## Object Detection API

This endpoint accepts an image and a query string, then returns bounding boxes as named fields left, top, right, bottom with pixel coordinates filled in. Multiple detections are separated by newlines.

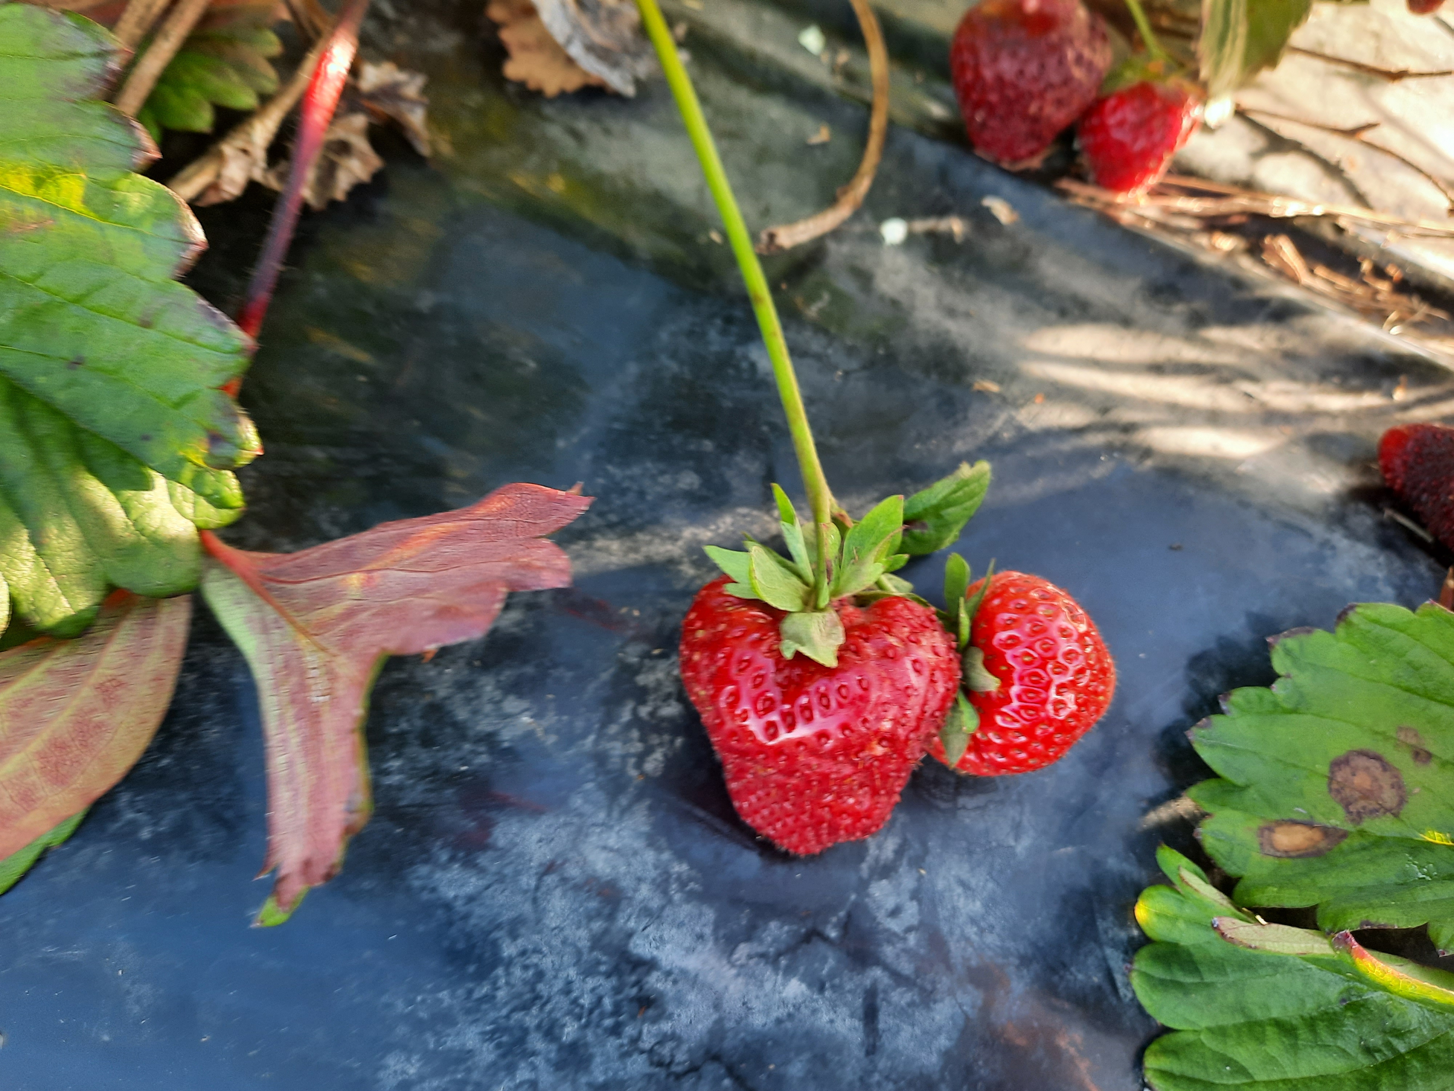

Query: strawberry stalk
left=722, top=228, right=846, bottom=642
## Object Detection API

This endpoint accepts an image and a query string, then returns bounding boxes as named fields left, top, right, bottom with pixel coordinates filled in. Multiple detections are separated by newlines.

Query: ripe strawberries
left=1089, top=76, right=1196, bottom=190
left=974, top=0, right=1095, bottom=157
left=695, top=564, right=952, bottom=851
left=932, top=587, right=1117, bottom=757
